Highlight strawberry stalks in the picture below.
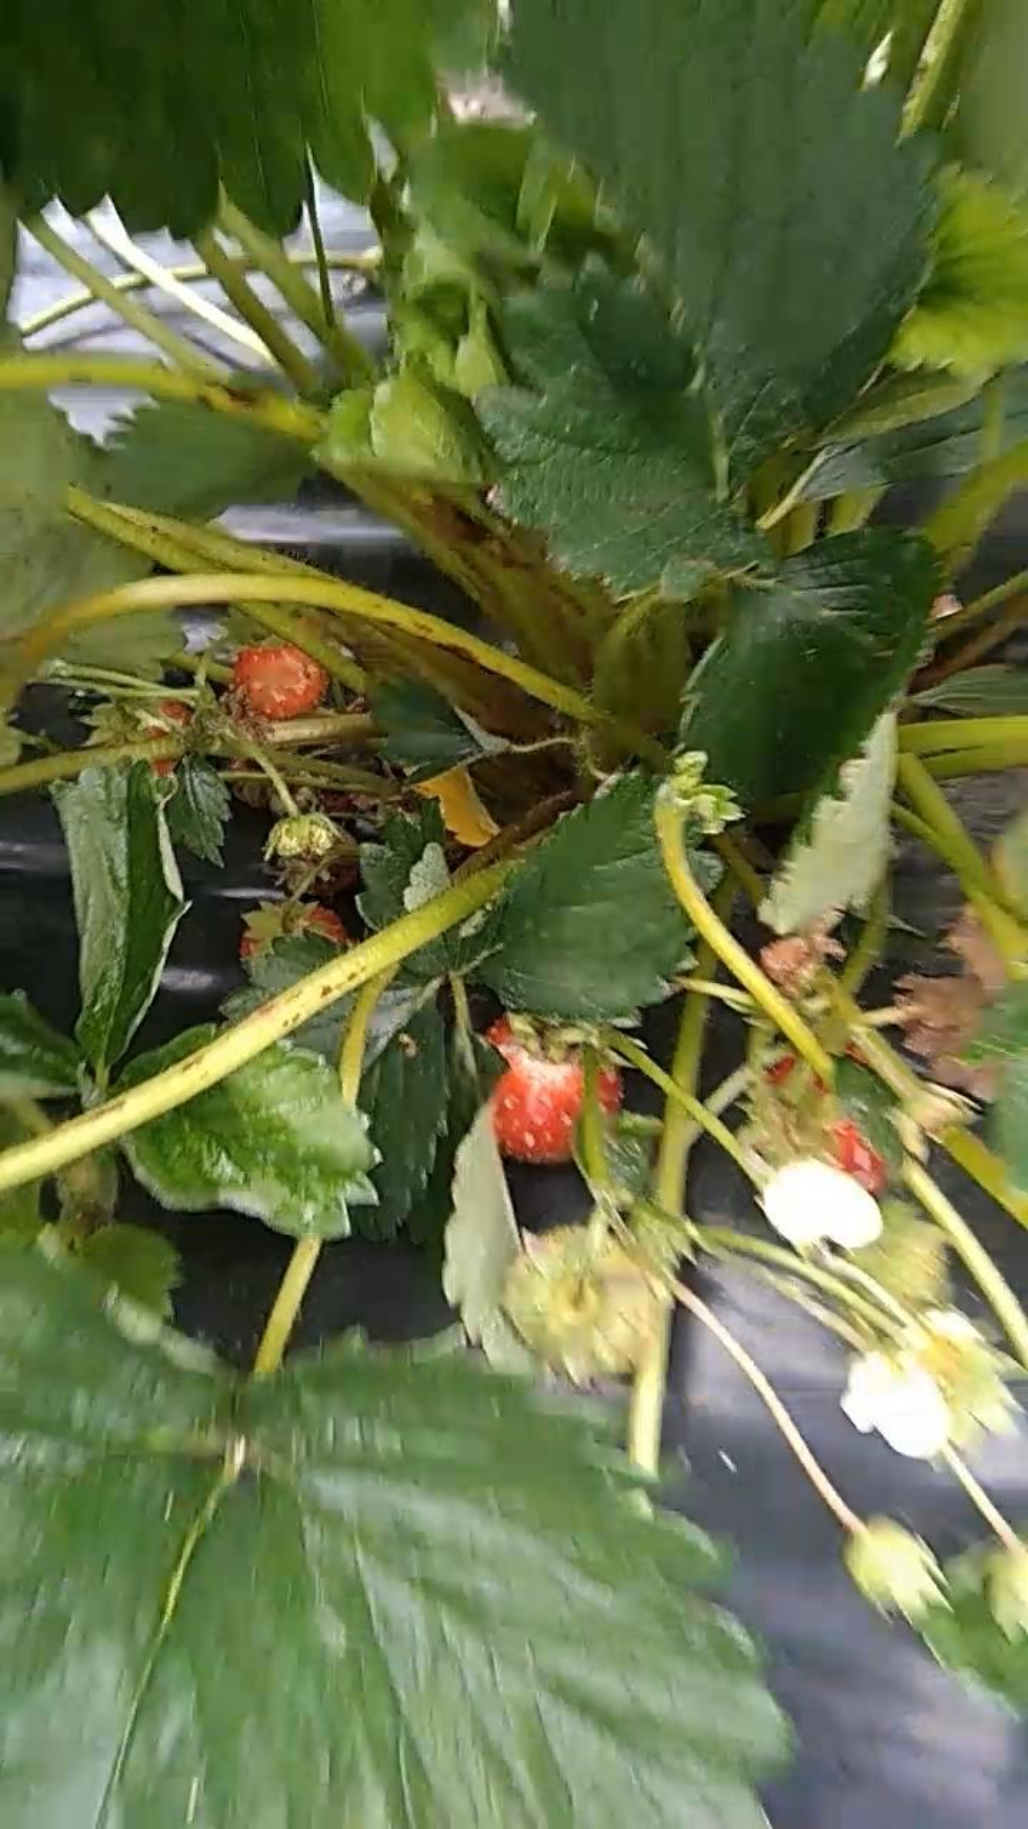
[269,864,328,930]
[520,994,687,1090]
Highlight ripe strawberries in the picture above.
[222,629,335,718]
[89,686,205,783]
[752,1038,928,1220]
[244,902,338,1006]
[470,1004,625,1168]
